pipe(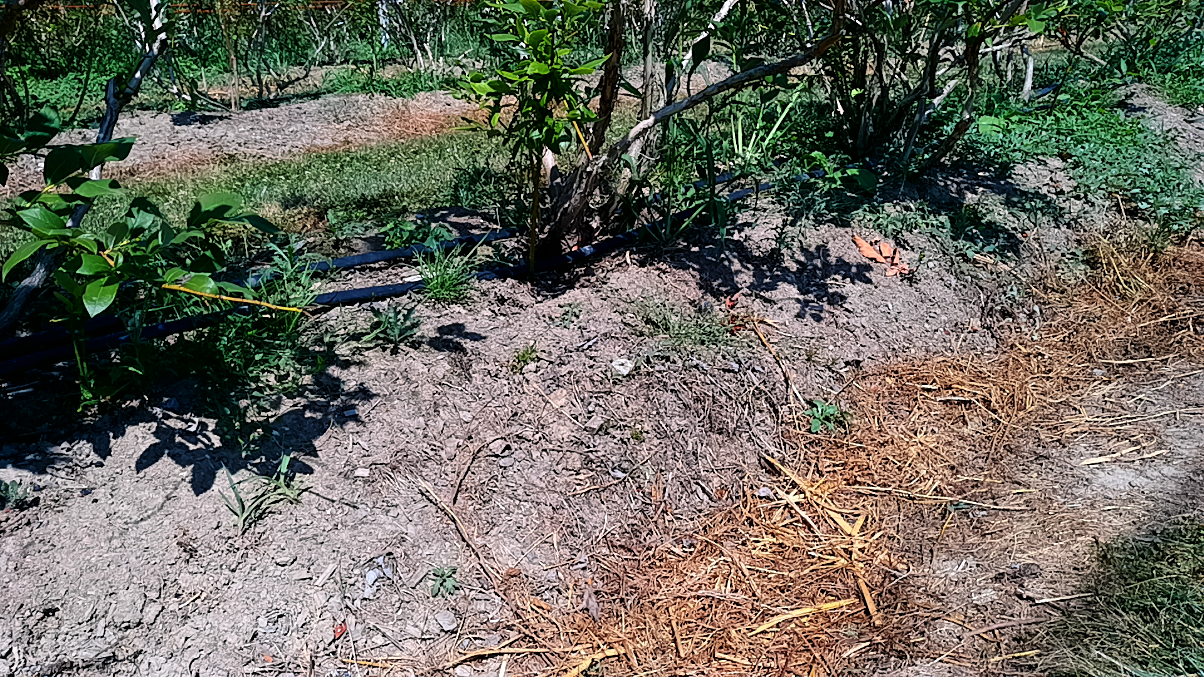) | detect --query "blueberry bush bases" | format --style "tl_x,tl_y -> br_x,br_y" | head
0,228 -> 95,431
177,76 -> 302,129
392,56 -> 484,96
1062,26 -> 1187,112
772,94 -> 983,245
488,162 -> 698,321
